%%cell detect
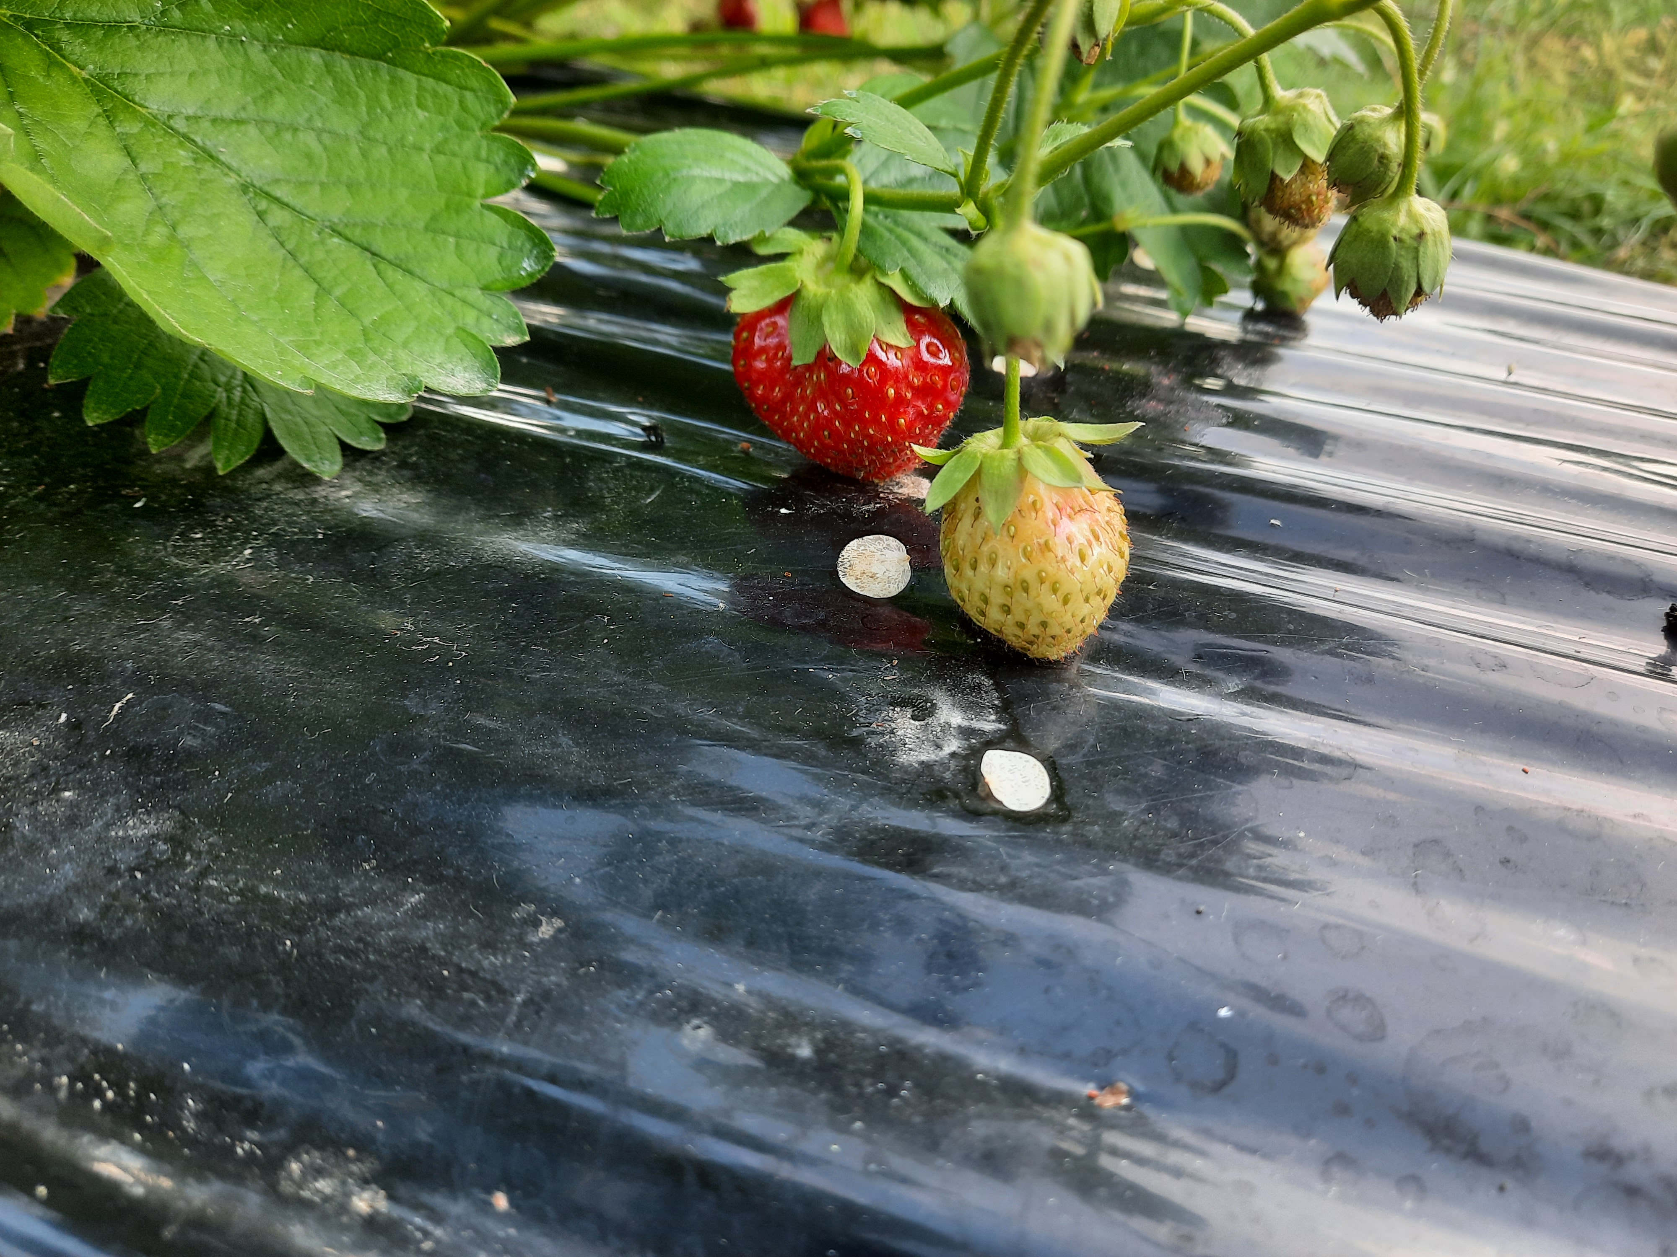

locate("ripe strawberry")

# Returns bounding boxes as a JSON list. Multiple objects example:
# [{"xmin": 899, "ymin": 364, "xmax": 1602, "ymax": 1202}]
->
[{"xmin": 741, "ymin": 259, "xmax": 968, "ymax": 462}]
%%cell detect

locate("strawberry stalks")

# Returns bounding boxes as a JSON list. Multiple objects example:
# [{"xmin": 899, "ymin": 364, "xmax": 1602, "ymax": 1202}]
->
[
  {"xmin": 984, "ymin": 326, "xmax": 1042, "ymax": 468},
  {"xmin": 801, "ymin": 139, "xmax": 879, "ymax": 332}
]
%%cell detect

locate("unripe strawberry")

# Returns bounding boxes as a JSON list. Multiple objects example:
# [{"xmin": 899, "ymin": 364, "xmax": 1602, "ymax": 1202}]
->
[{"xmin": 936, "ymin": 448, "xmax": 1132, "ymax": 659}]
